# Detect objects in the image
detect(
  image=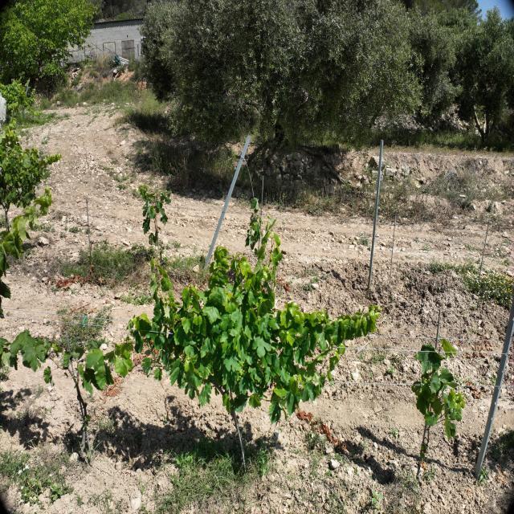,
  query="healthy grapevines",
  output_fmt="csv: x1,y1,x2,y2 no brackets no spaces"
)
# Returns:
140,267,377,493
0,314,135,473
404,334,468,490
